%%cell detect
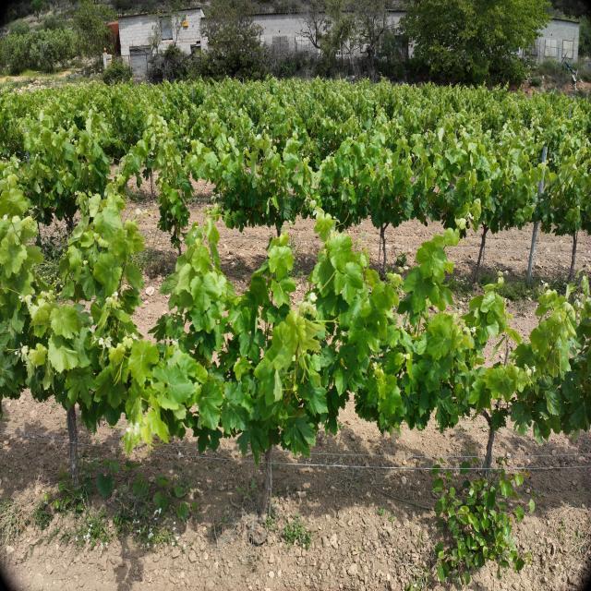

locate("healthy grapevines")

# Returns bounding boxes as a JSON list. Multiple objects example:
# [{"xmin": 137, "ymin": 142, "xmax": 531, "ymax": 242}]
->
[
  {"xmin": 0, "ymin": 174, "xmax": 190, "ymax": 513},
  {"xmin": 152, "ymin": 199, "xmax": 396, "ymax": 543},
  {"xmin": 382, "ymin": 225, "xmax": 591, "ymax": 497}
]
